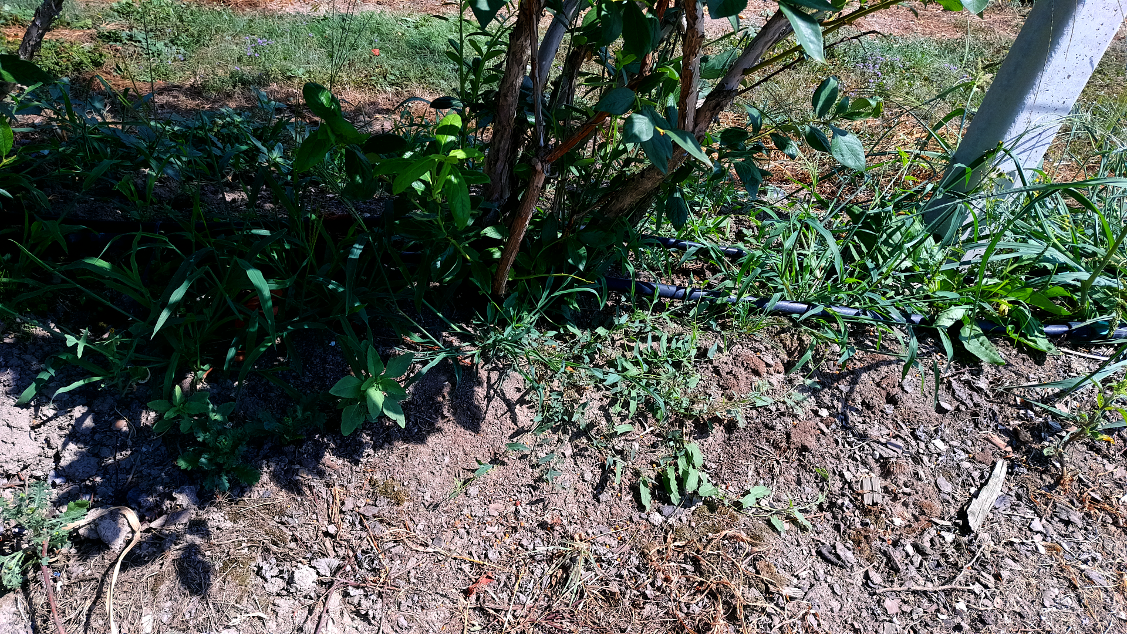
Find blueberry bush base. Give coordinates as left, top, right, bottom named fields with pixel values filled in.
left=446, top=54, right=693, bottom=354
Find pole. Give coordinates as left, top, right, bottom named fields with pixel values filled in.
left=900, top=0, right=1126, bottom=274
